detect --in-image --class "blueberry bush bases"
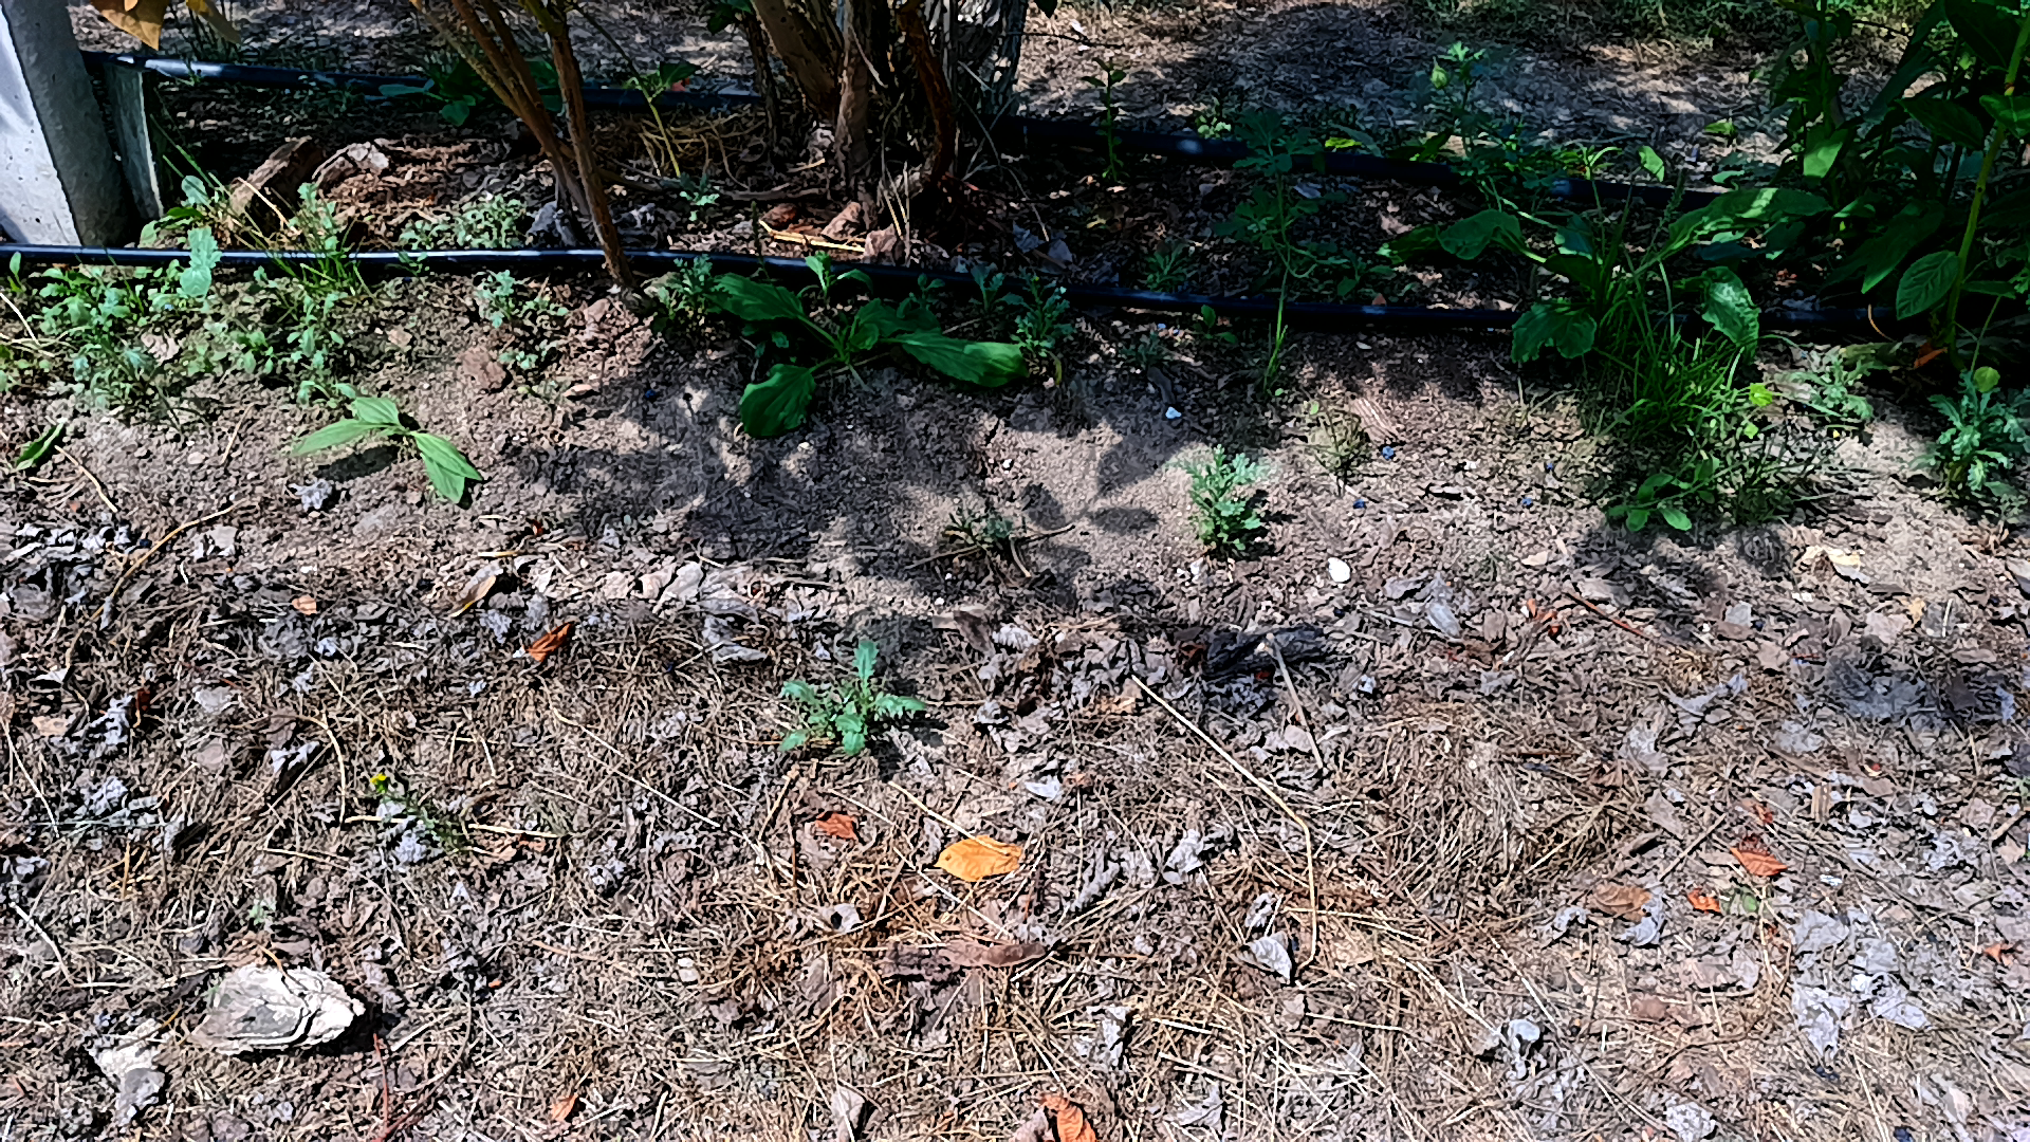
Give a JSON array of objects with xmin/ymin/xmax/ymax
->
[
  {"xmin": 1751, "ymin": 100, "xmax": 2028, "ymax": 457},
  {"xmin": 465, "ymin": 13, "xmax": 1054, "ymax": 369}
]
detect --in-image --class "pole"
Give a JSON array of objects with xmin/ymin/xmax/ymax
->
[{"xmin": 0, "ymin": 12, "xmax": 145, "ymax": 257}]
